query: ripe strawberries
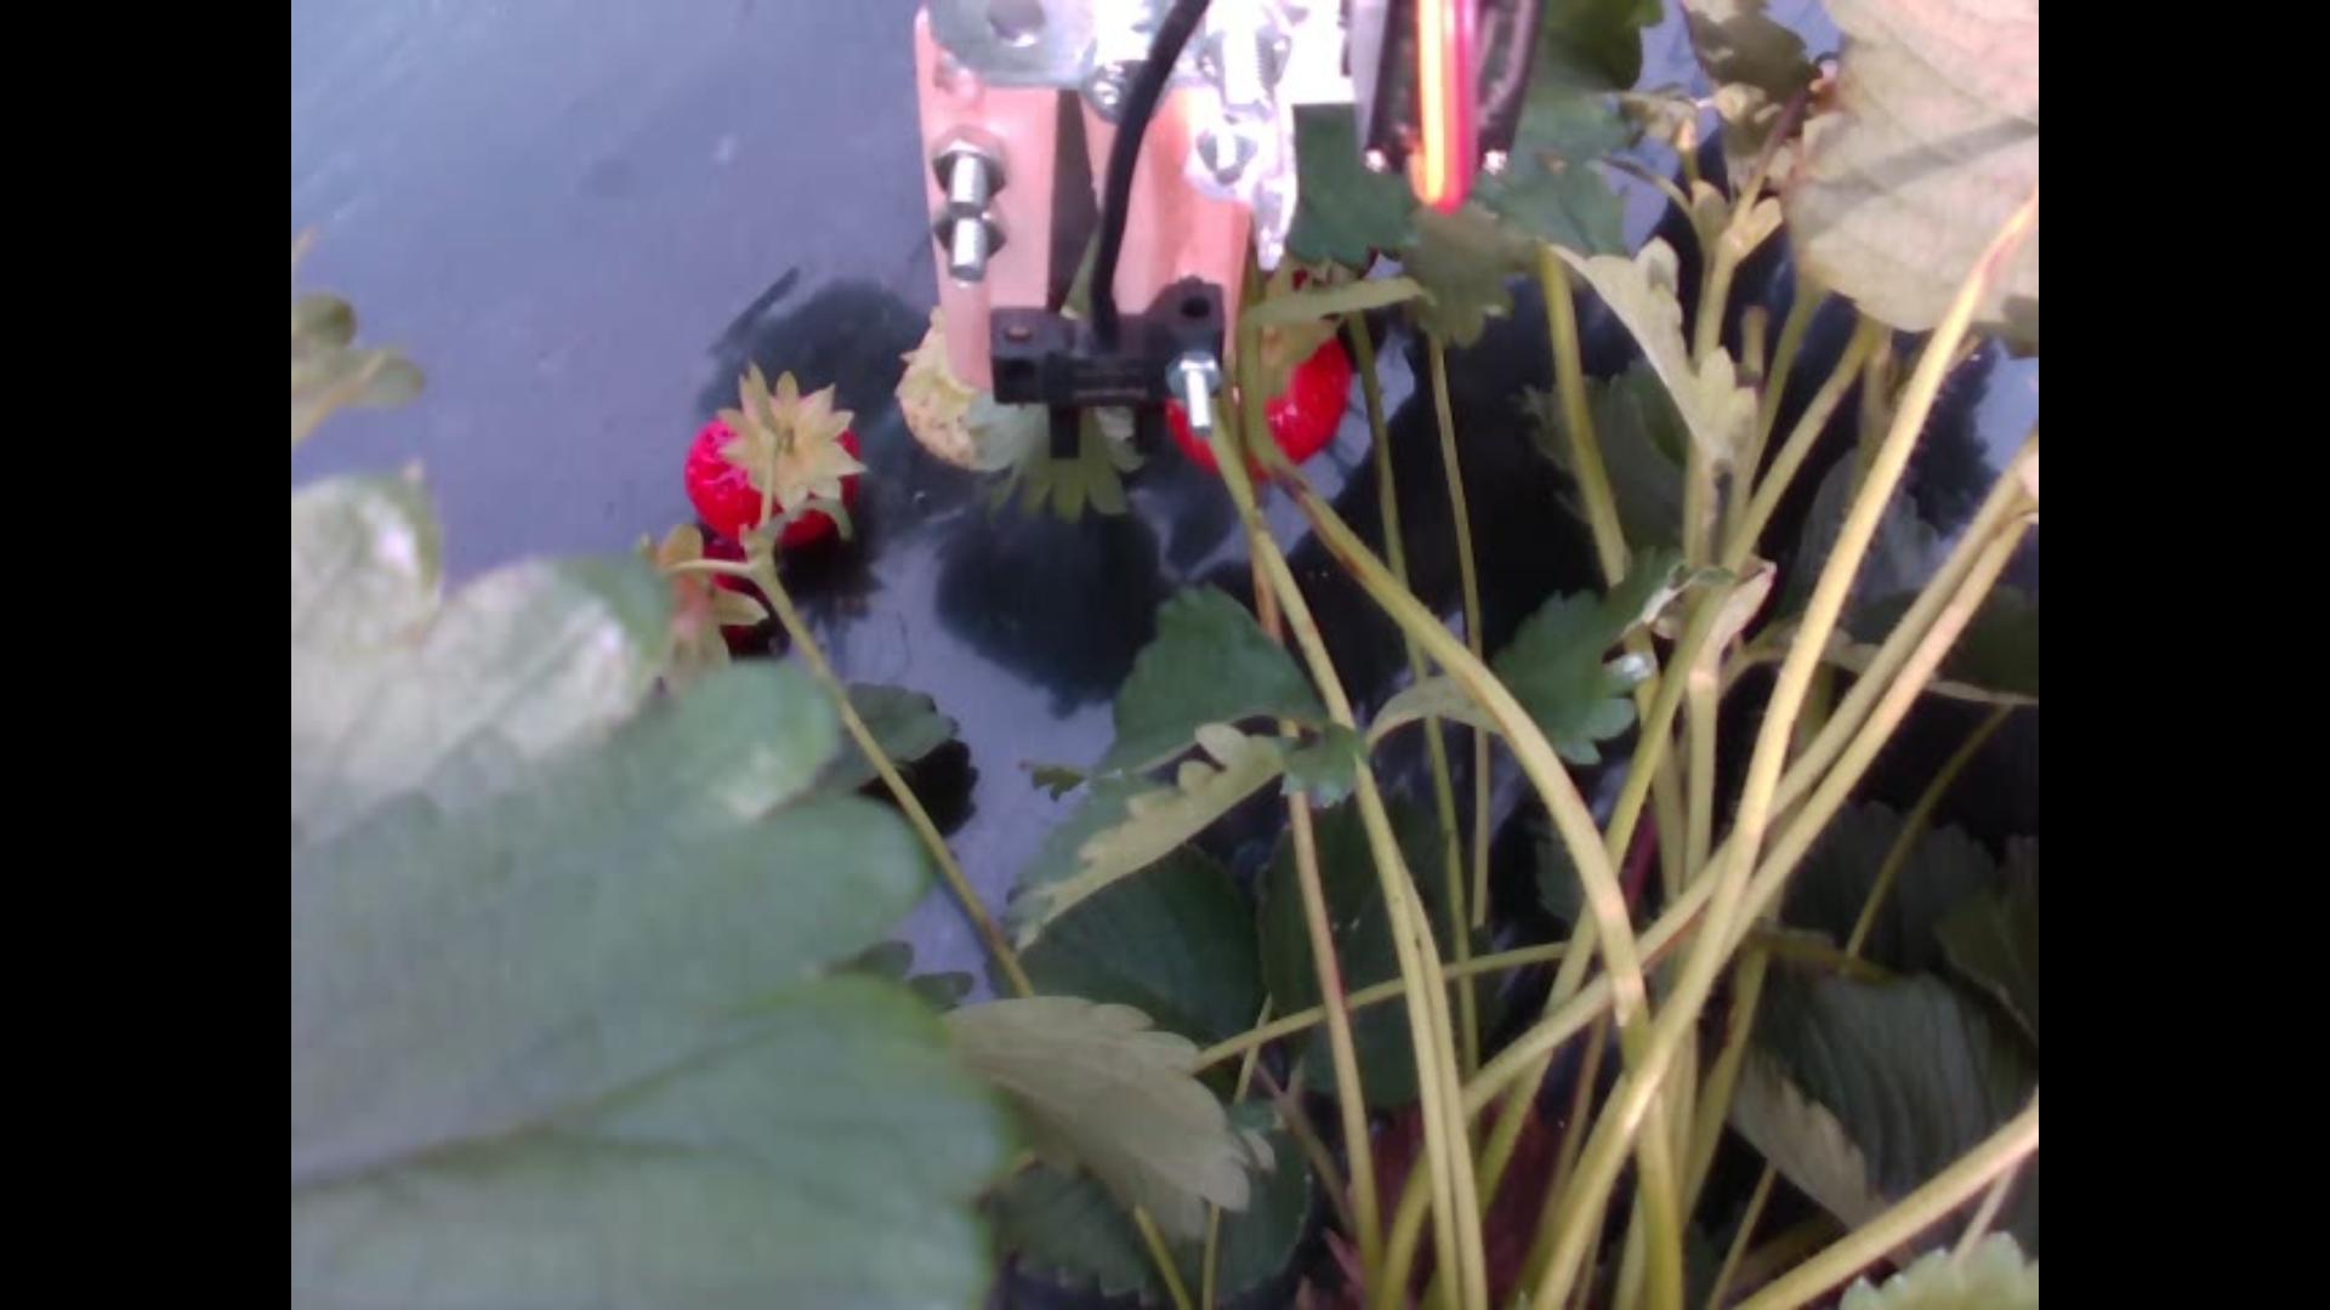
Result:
[1168,283,1368,481]
[692,401,856,561]
[652,540,777,652]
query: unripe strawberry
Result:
[884,300,1061,477]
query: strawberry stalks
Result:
[659,540,765,612]
[754,423,786,551]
